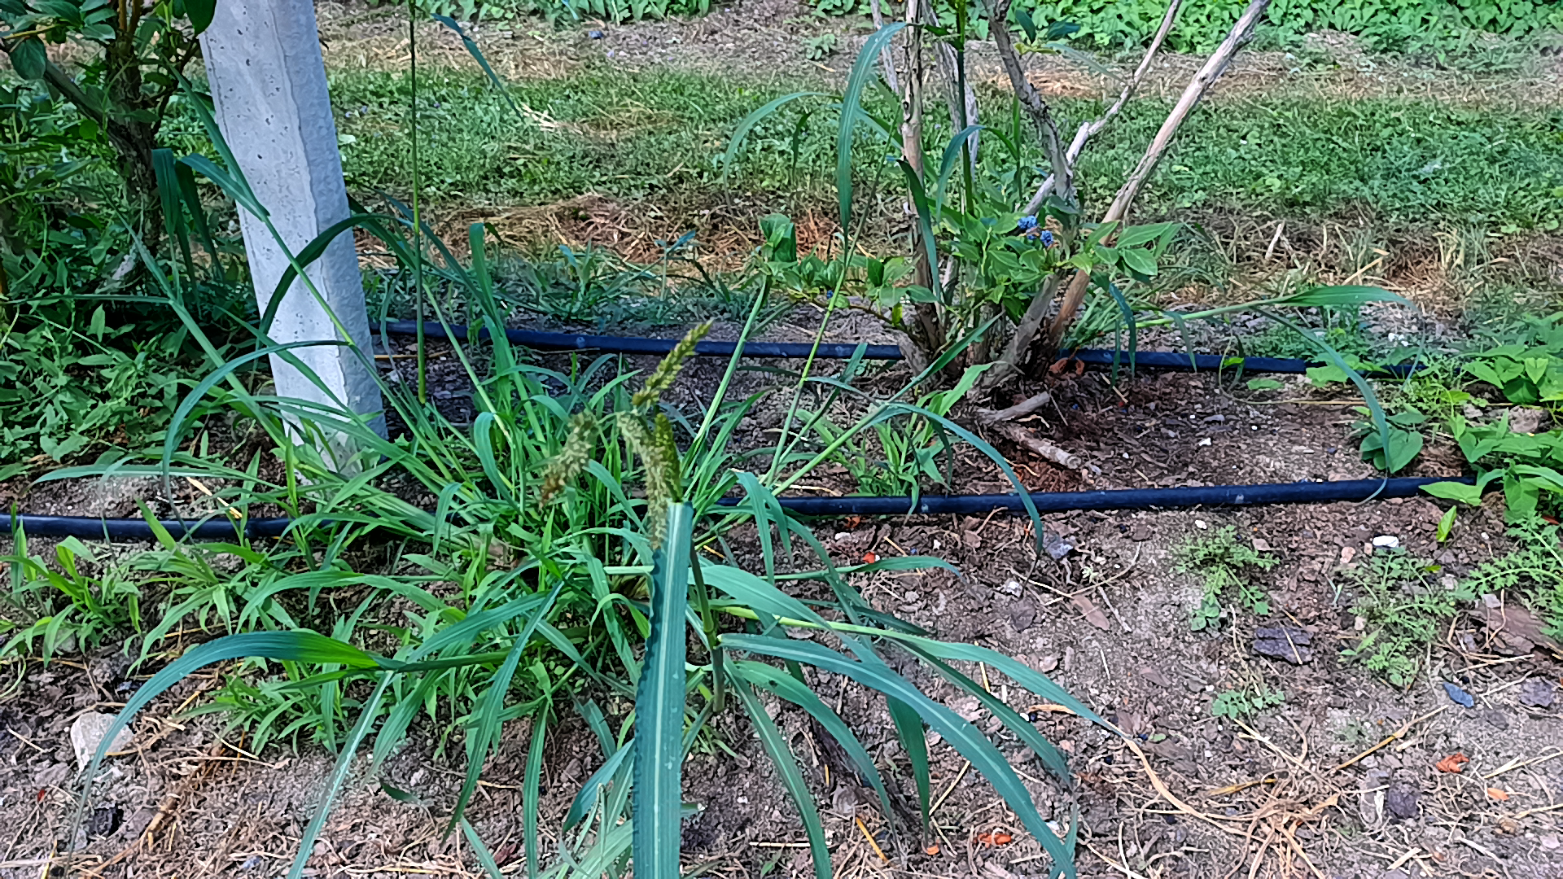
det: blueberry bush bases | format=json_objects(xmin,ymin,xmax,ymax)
[
  {"xmin": 0, "ymin": 81, "xmax": 190, "ymax": 381},
  {"xmin": 846, "ymin": 164, "xmax": 1170, "ymax": 497}
]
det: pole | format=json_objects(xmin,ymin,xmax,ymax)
[{"xmin": 208, "ymin": 0, "xmax": 401, "ymax": 461}]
